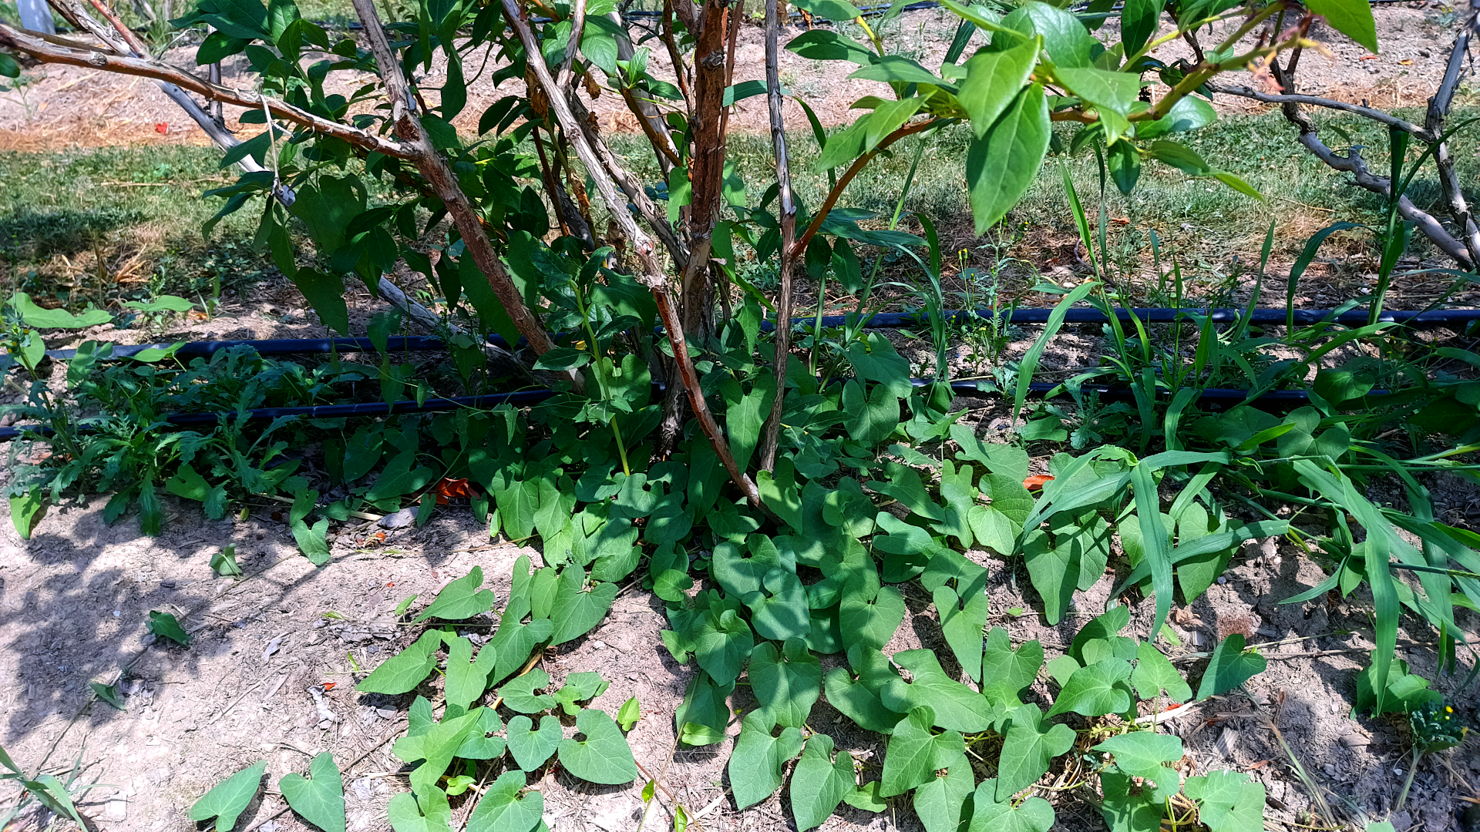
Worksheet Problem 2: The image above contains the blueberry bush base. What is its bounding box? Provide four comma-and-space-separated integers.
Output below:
409, 189, 859, 579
